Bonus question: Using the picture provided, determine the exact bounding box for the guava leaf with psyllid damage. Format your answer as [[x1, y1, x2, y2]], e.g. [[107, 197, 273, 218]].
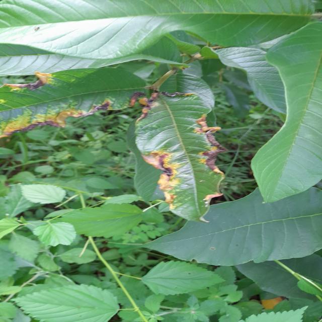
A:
[[131, 90, 231, 230]]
